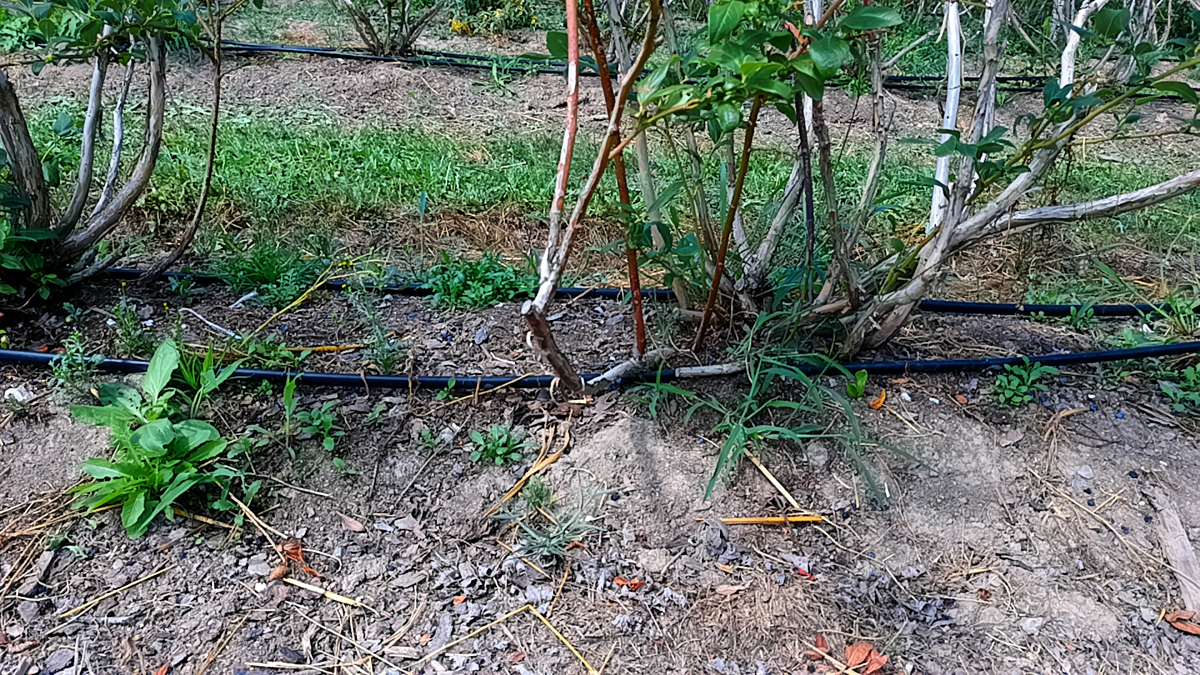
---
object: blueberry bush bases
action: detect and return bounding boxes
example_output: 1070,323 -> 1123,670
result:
0,153 -> 172,352
642,191 -> 997,400
342,18 -> 436,73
